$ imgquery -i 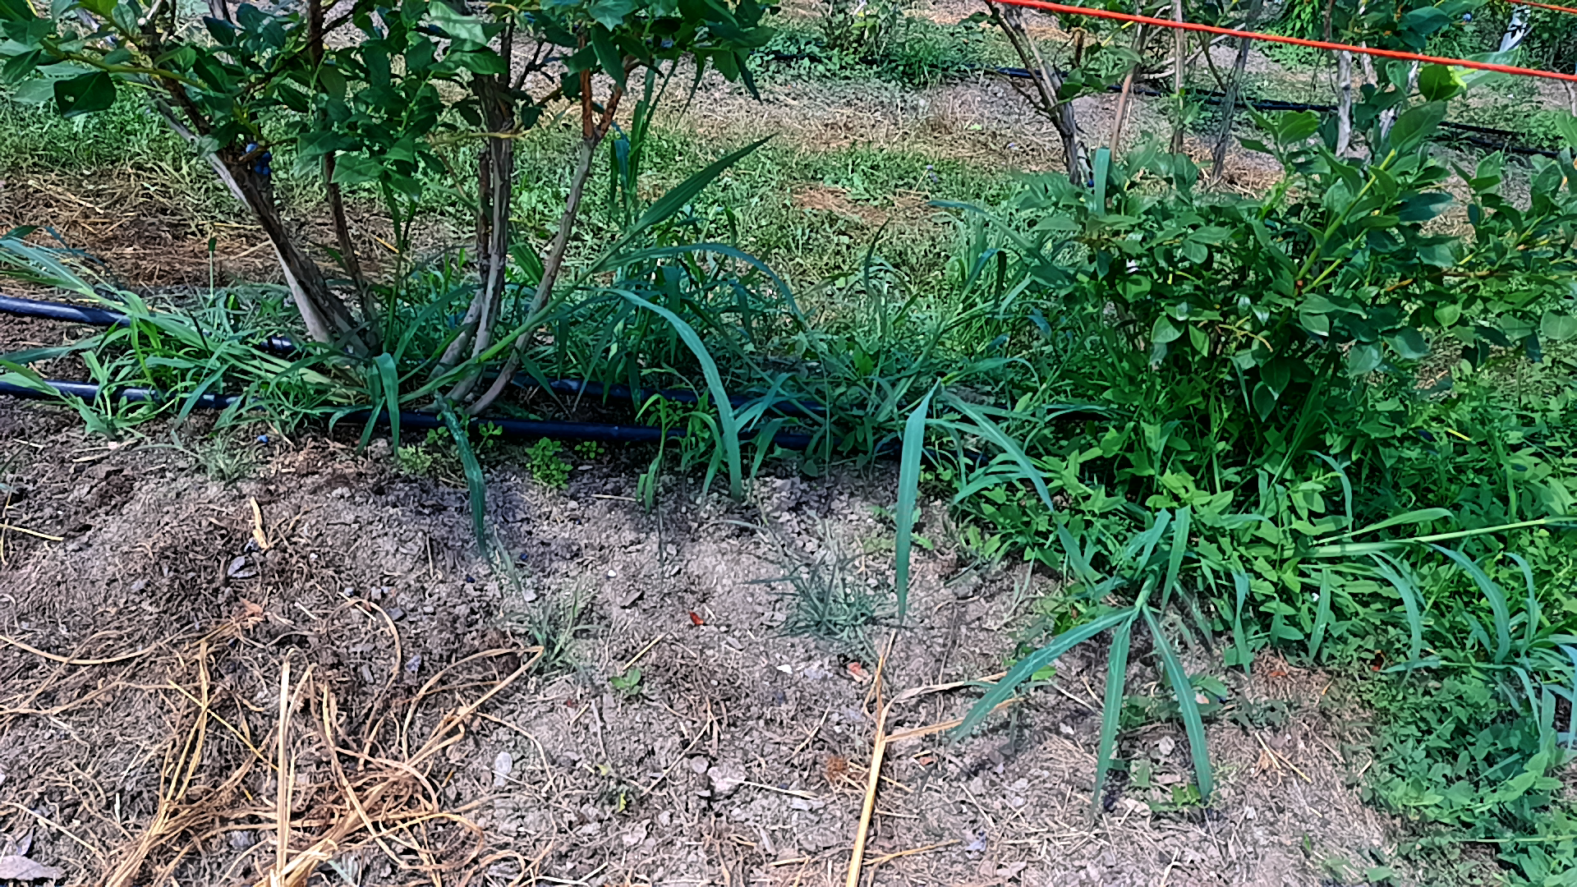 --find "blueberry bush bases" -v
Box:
[247,216,613,477]
[797,15,892,79]
[985,51,1440,586]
